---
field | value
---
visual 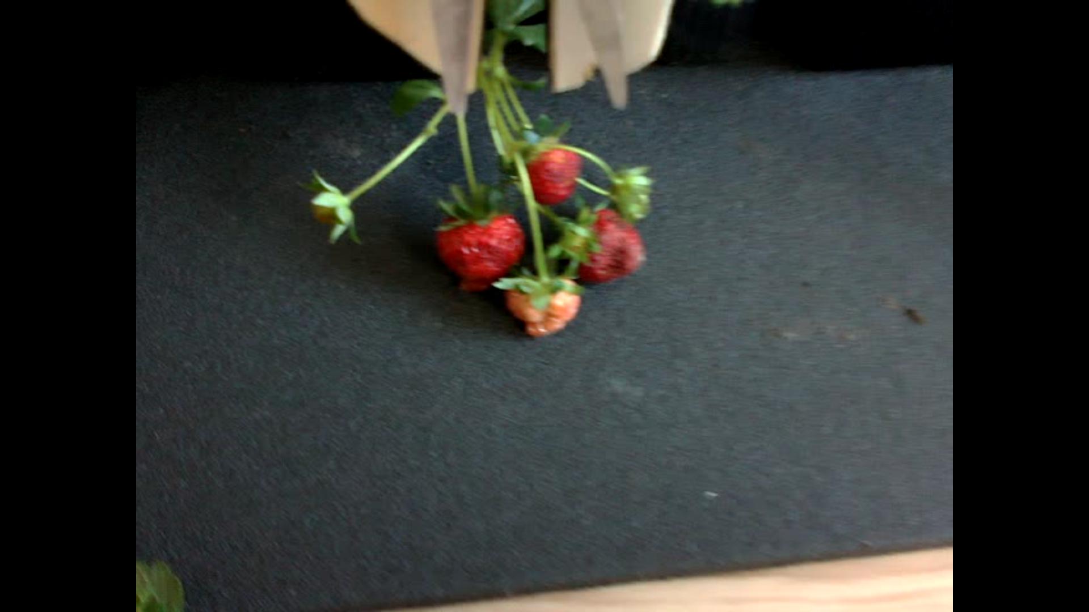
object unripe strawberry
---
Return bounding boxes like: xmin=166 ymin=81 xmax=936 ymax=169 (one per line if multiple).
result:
xmin=502 ymin=278 xmax=607 ymax=341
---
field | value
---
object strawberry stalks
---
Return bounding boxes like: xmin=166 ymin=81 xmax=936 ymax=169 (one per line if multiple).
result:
xmin=504 ymin=85 xmax=556 ymax=158
xmin=341 ymin=160 xmax=398 ymax=204
xmin=589 ymin=149 xmax=632 ymax=195
xmin=516 ymin=155 xmax=564 ymax=302
xmin=453 ymin=114 xmax=500 ymax=239
xmin=536 ymin=204 xmax=595 ymax=257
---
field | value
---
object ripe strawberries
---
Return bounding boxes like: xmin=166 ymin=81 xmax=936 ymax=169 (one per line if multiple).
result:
xmin=423 ymin=206 xmax=523 ymax=285
xmin=501 ymin=135 xmax=595 ymax=224
xmin=552 ymin=204 xmax=646 ymax=286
